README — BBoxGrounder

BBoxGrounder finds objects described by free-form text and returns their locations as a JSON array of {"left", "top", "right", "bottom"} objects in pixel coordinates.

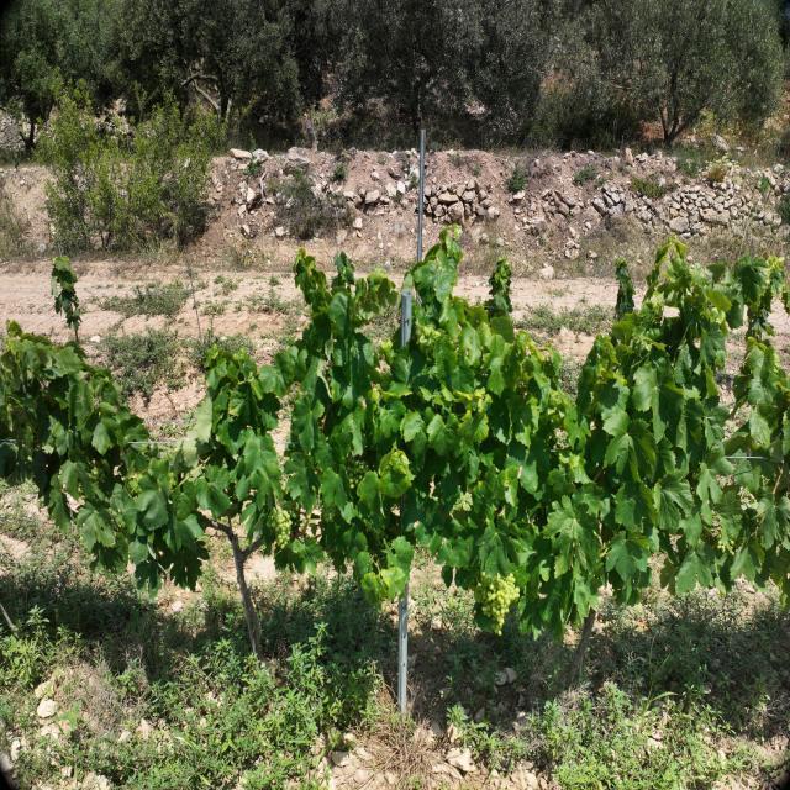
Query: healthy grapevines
[
  {"left": 430, "top": 242, "right": 790, "bottom": 710},
  {"left": 1, "top": 246, "right": 430, "bottom": 696}
]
